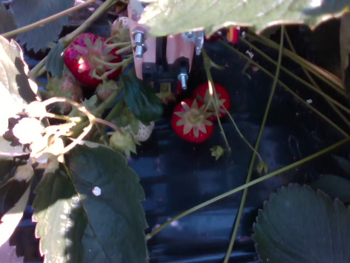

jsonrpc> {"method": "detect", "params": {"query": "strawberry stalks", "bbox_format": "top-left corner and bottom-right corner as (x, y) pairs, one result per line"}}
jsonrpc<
(86, 54), (138, 67)
(191, 98), (214, 125)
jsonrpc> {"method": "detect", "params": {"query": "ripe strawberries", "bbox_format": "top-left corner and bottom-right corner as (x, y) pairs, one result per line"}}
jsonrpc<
(63, 36), (119, 82)
(170, 99), (210, 141)
(196, 82), (232, 116)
